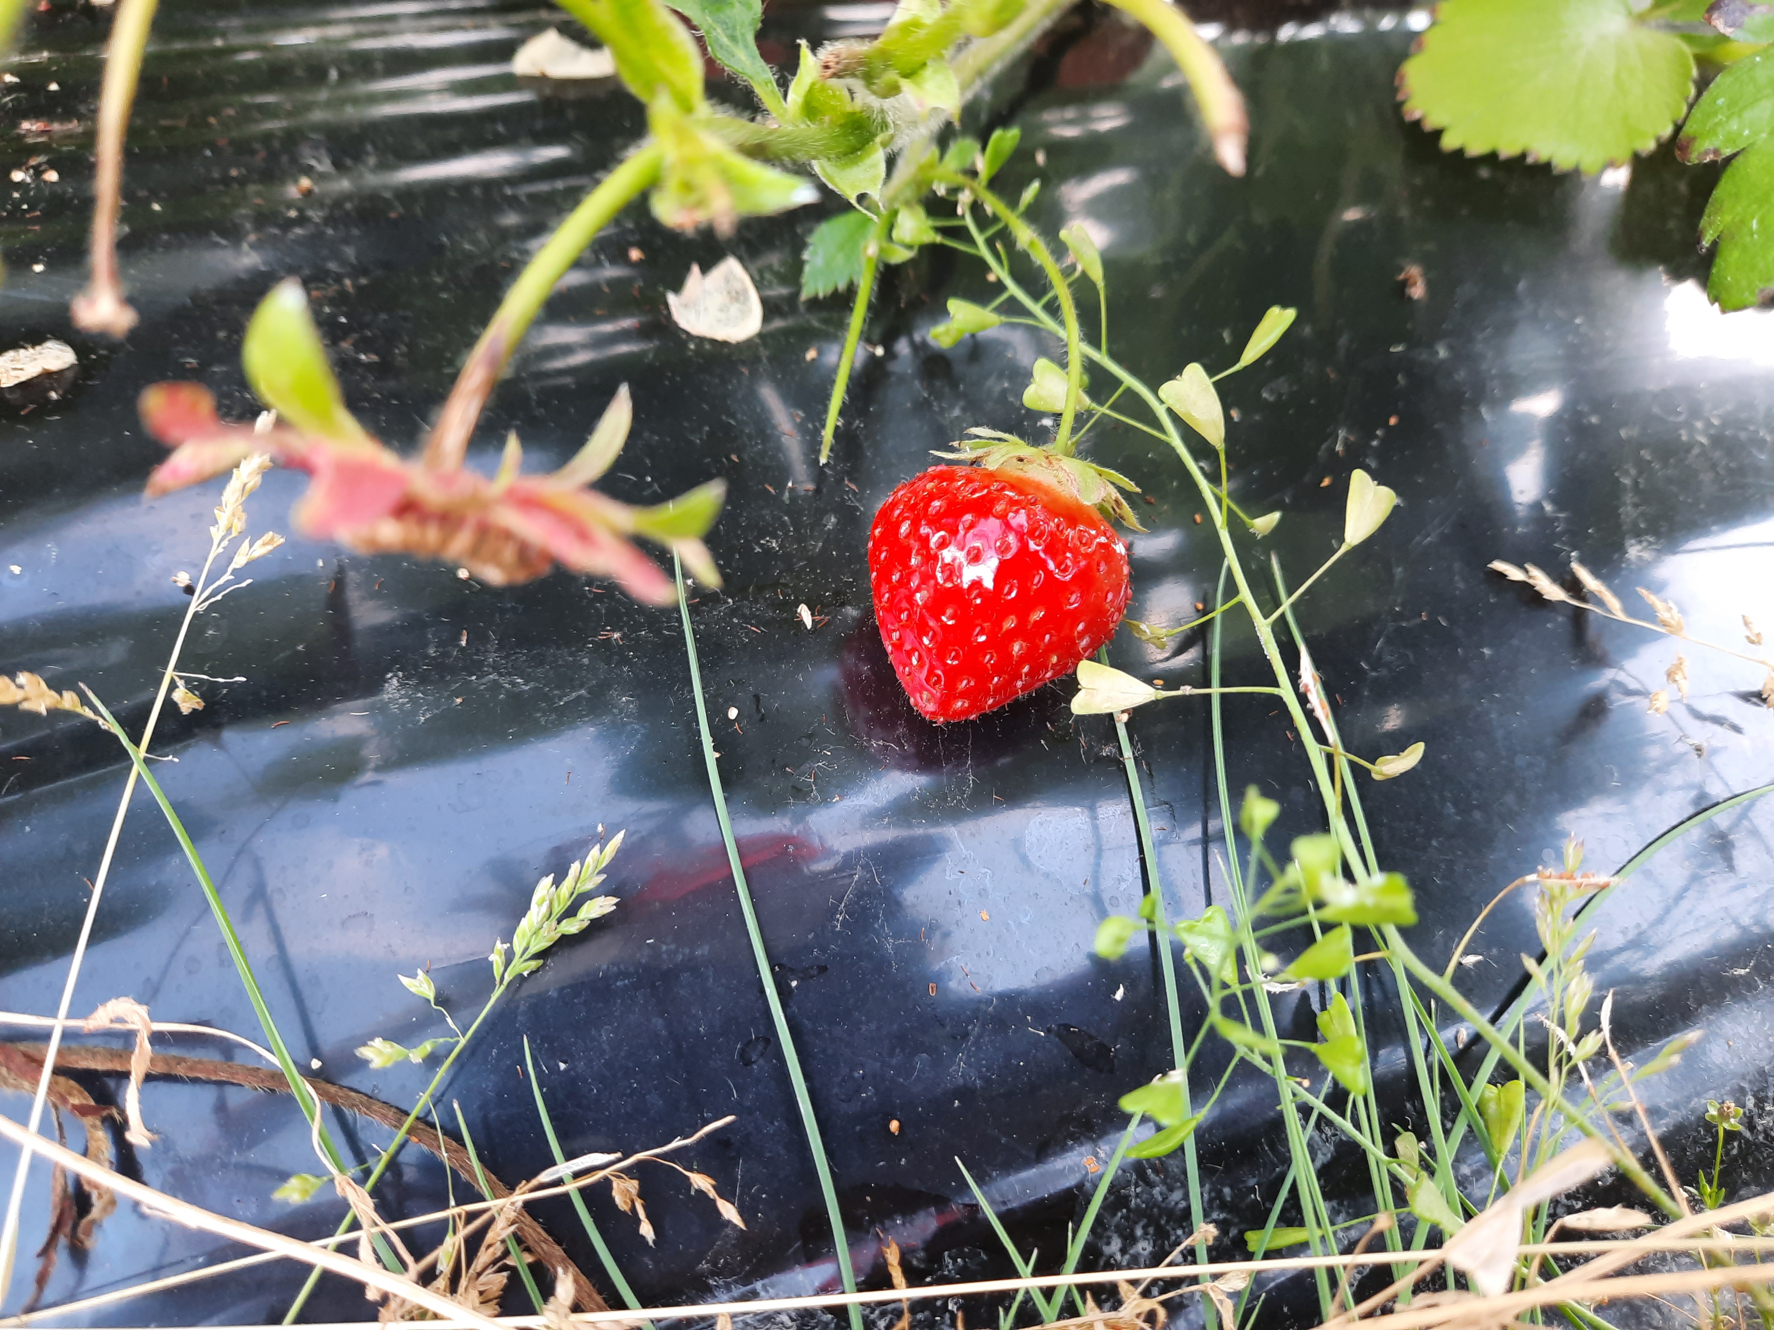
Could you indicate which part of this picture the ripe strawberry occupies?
[839,446,1164,746]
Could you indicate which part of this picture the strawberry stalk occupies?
[1022,316,1110,527]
